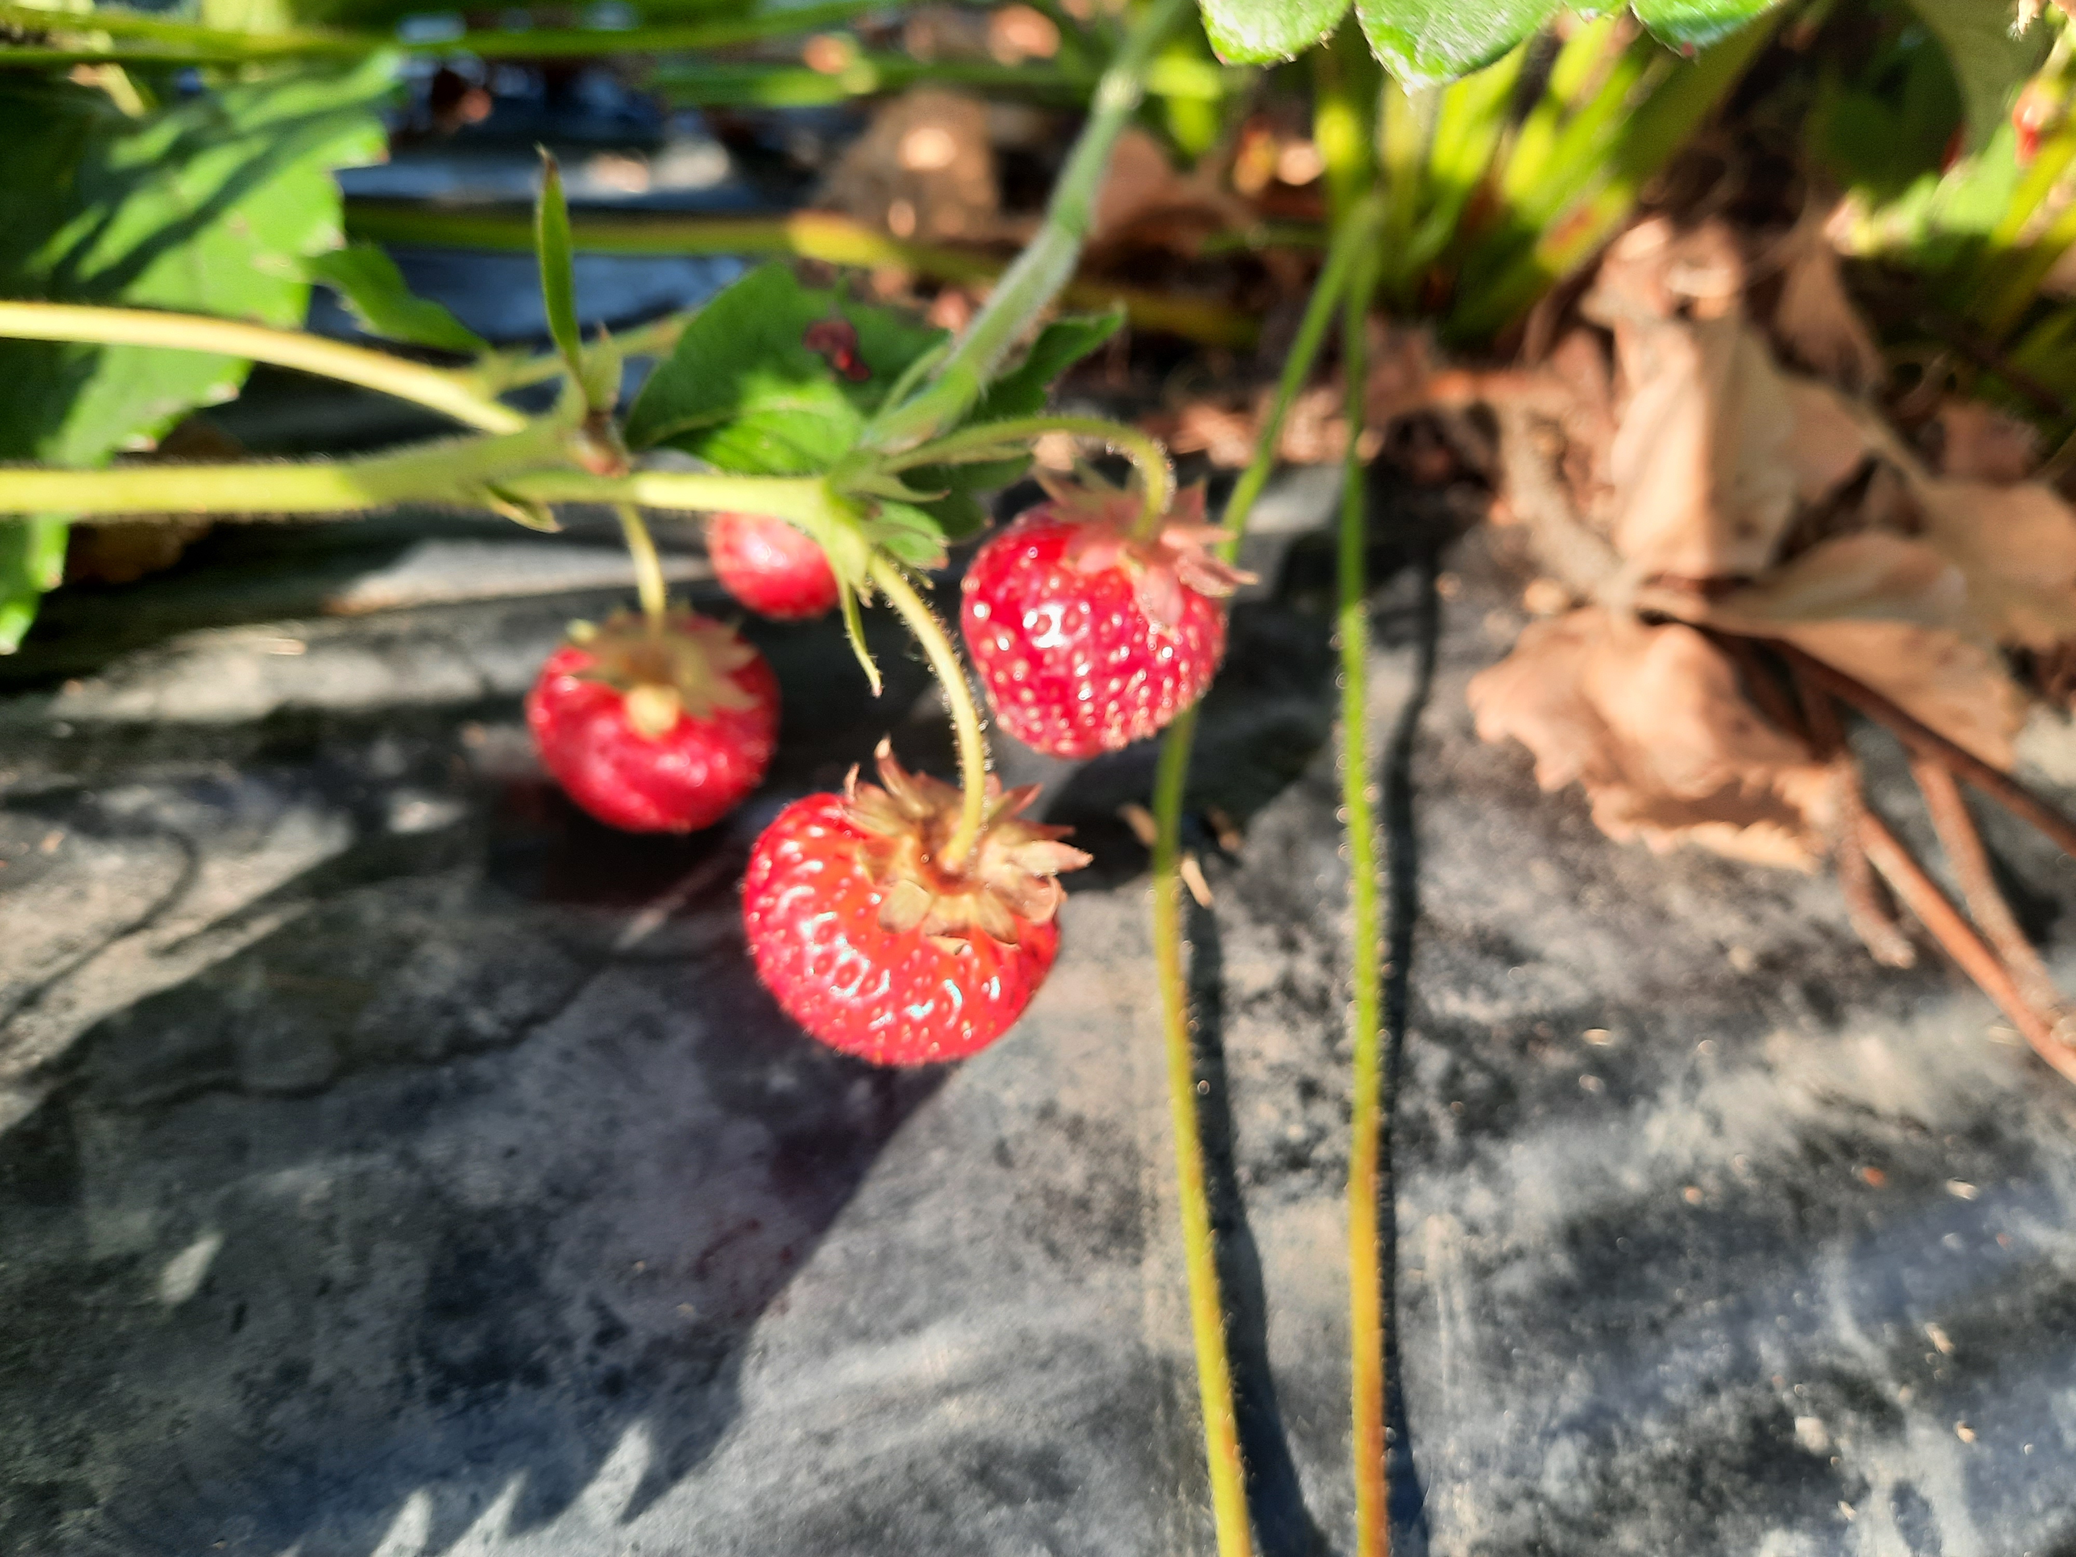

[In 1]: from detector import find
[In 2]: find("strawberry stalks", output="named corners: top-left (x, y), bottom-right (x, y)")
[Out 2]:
top-left (862, 566), bottom-right (992, 891)
top-left (975, 404), bottom-right (1189, 566)
top-left (581, 442), bottom-right (676, 685)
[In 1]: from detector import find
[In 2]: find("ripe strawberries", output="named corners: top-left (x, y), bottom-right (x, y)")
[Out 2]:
top-left (751, 775), bottom-right (1048, 1056)
top-left (522, 616), bottom-right (766, 822)
top-left (965, 528), bottom-right (1220, 736)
